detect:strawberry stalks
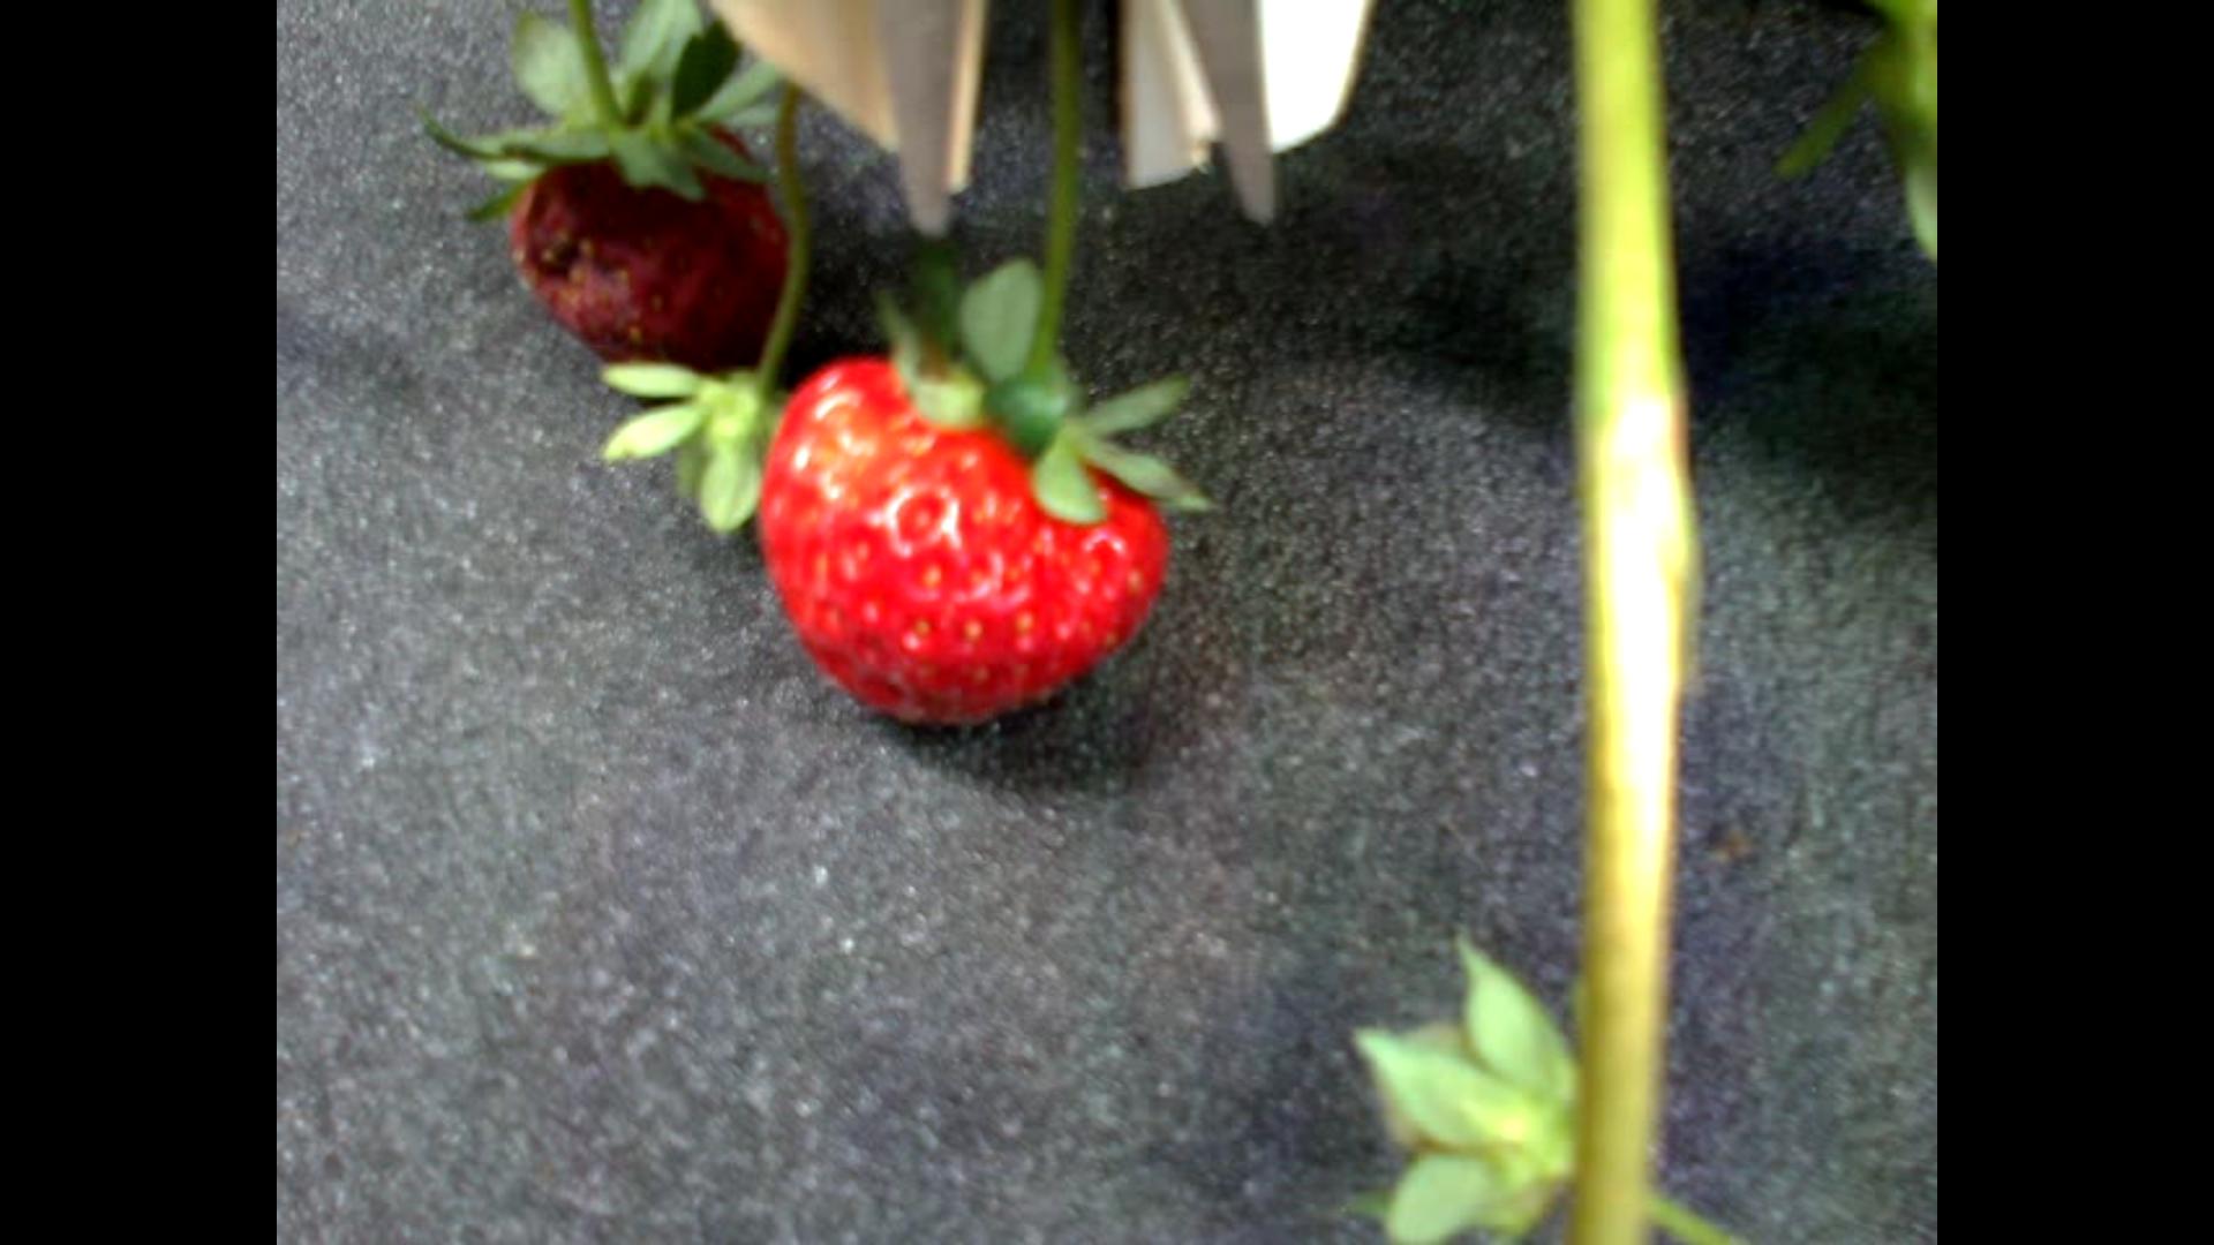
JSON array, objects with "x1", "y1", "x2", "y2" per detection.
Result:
[
  {"x1": 560, "y1": 3, "x2": 665, "y2": 186},
  {"x1": 990, "y1": 40, "x2": 1118, "y2": 499},
  {"x1": 724, "y1": 184, "x2": 784, "y2": 450}
]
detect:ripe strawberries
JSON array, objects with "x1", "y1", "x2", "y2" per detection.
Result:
[
  {"x1": 759, "y1": 342, "x2": 1173, "y2": 734},
  {"x1": 492, "y1": 138, "x2": 821, "y2": 359}
]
